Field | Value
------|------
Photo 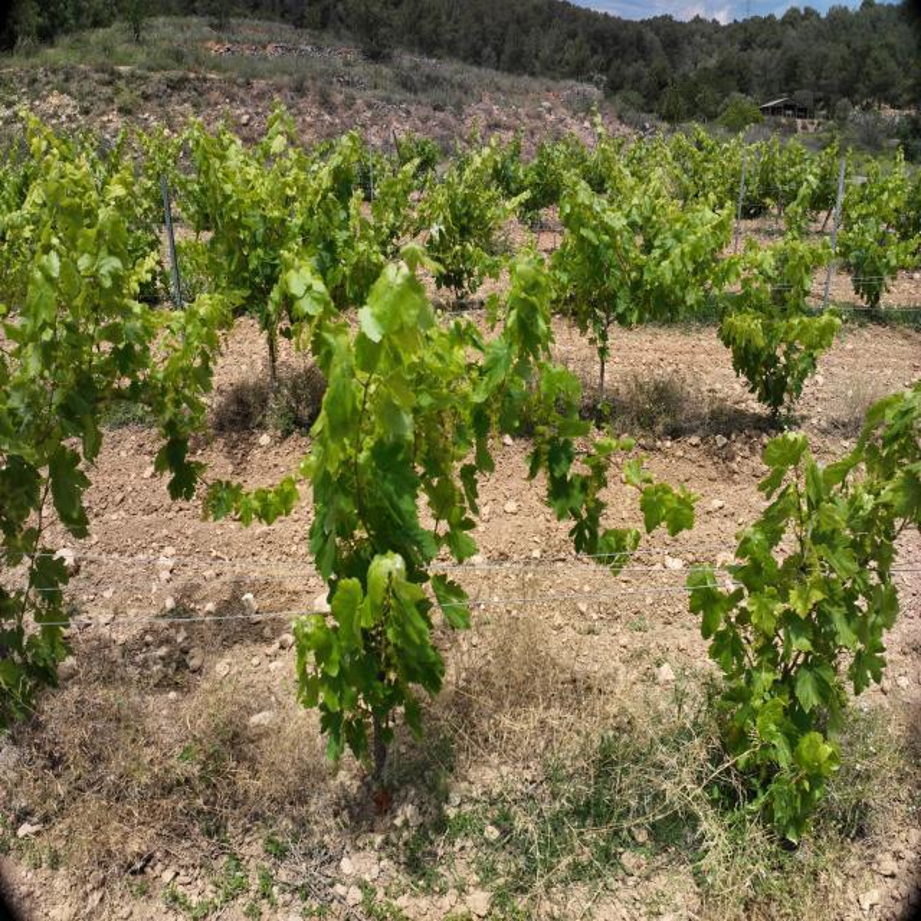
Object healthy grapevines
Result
[688,394,921,866]
[0,211,135,771]
[224,255,593,816]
